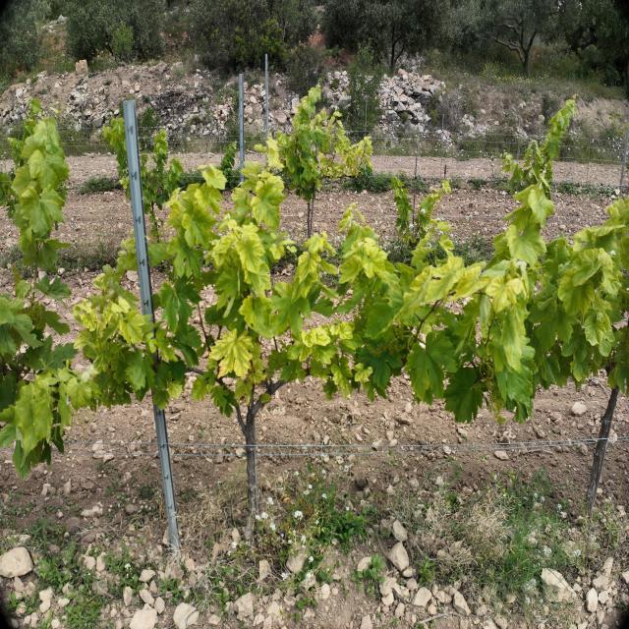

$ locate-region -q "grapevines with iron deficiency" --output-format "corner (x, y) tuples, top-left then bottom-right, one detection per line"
(473, 158), (629, 543)
(46, 140), (471, 551)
